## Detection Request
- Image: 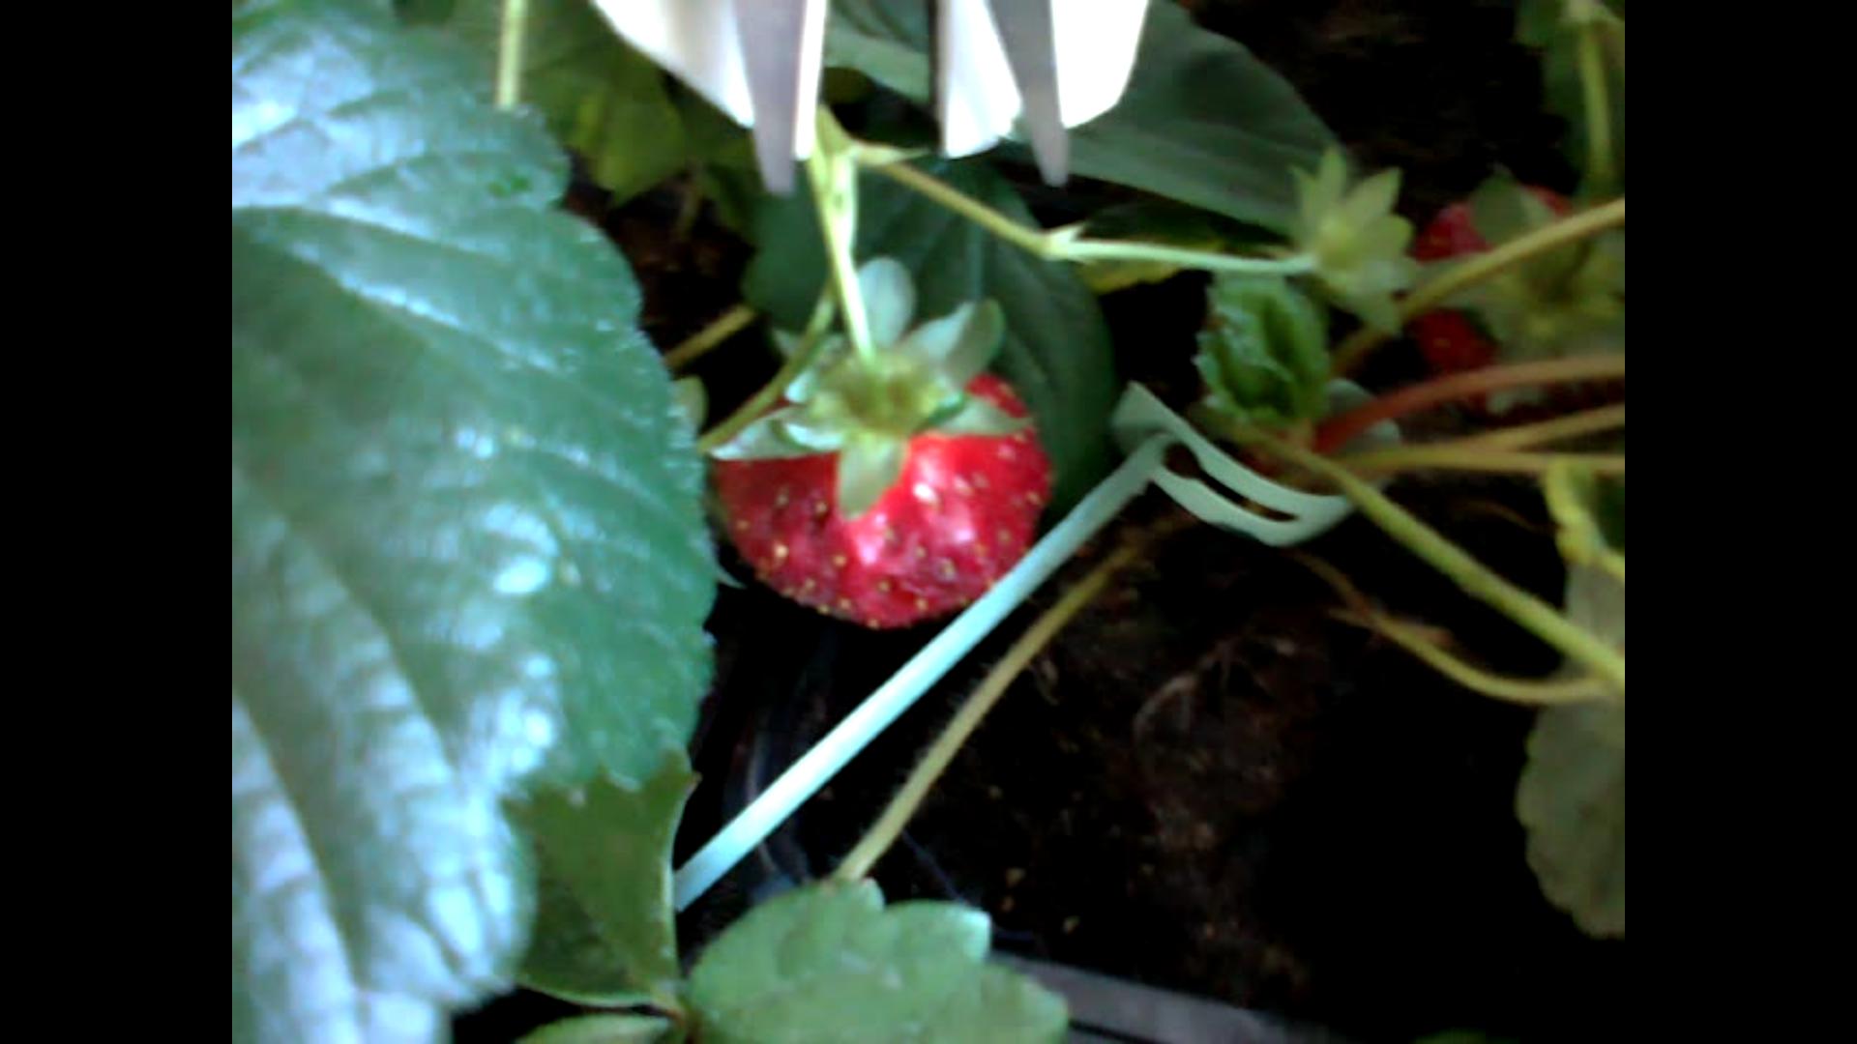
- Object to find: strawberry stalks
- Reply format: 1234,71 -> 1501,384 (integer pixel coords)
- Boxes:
791,165 -> 943,469
1168,182 -> 1360,305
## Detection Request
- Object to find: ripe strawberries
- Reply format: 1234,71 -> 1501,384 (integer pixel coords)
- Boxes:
598,316 -> 1087,645
1413,175 -> 1593,417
